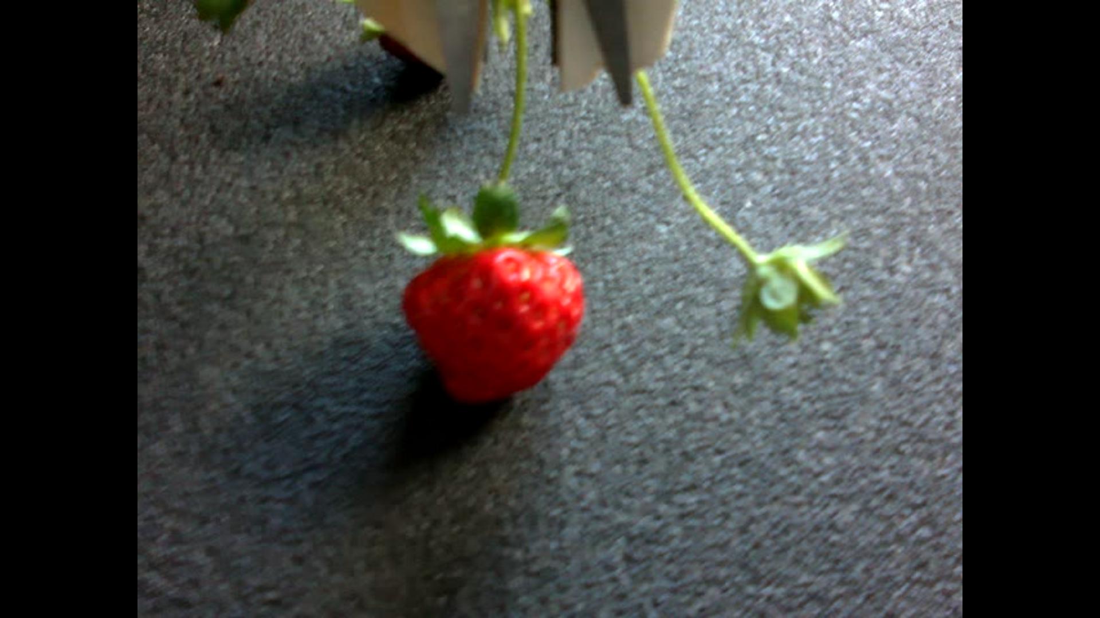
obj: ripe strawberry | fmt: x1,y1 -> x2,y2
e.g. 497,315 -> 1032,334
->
393,216 -> 594,411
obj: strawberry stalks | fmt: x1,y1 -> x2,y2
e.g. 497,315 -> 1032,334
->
491,0 -> 535,259
681,171 -> 775,267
